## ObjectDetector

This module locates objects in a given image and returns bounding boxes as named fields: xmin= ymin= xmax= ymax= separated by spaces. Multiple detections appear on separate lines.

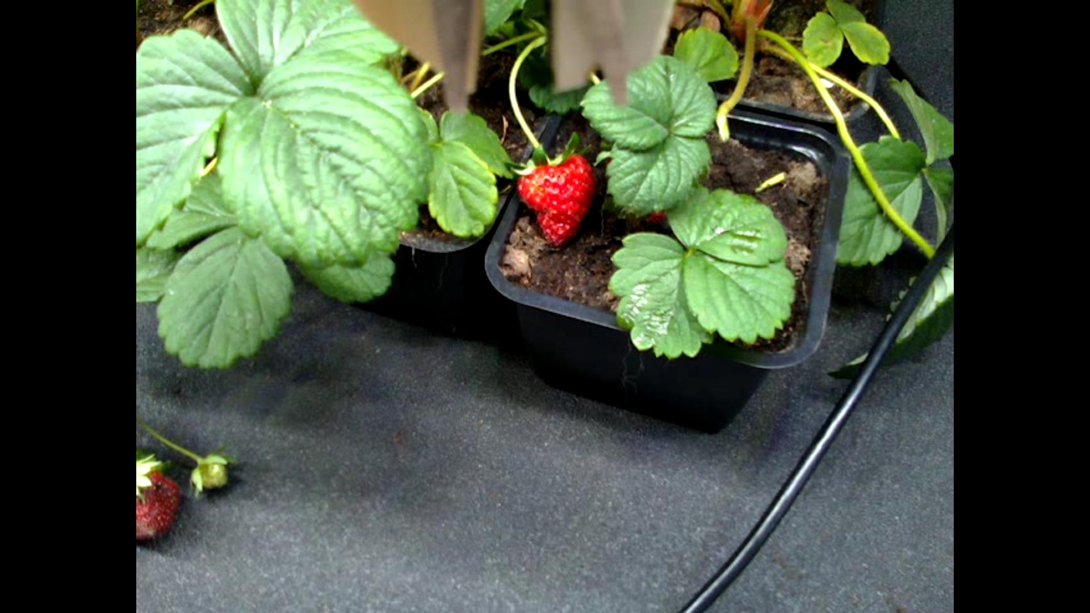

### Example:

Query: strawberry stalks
xmin=146 ymin=421 xmax=208 ymax=470
xmin=504 ymin=58 xmax=566 ymax=182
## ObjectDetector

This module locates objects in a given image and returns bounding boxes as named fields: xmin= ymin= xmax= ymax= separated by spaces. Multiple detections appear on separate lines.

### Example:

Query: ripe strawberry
xmin=513 ymin=158 xmax=601 ymax=245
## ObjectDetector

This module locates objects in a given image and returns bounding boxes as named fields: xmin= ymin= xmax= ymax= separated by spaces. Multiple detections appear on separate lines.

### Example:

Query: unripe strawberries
xmin=188 ymin=450 xmax=234 ymax=488
xmin=135 ymin=453 xmax=186 ymax=542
